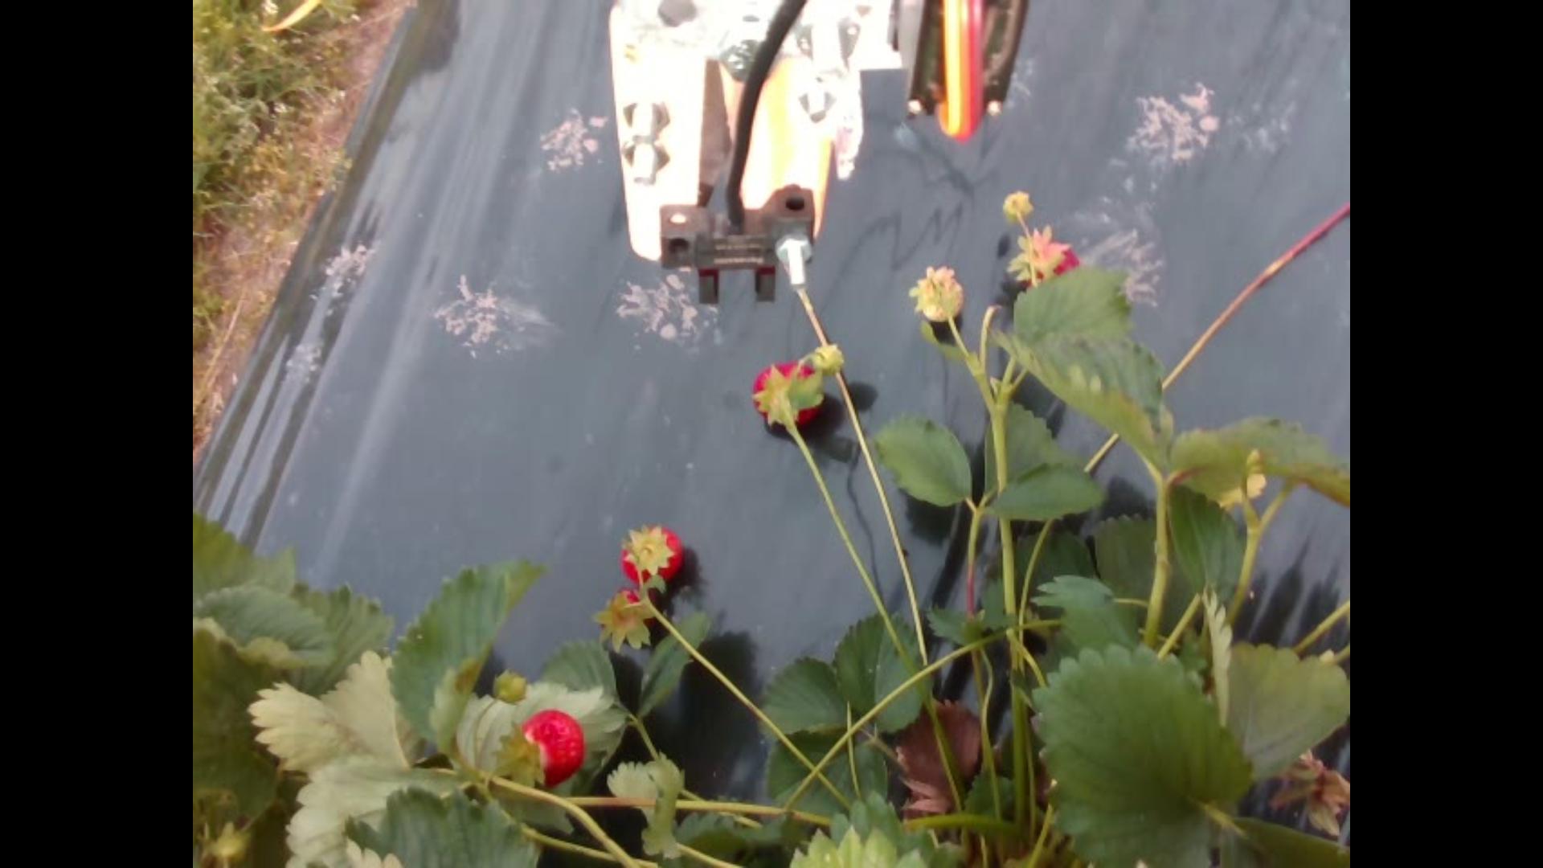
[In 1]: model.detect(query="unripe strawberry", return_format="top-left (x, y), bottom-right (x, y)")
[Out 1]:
top-left (909, 262), bottom-right (973, 334)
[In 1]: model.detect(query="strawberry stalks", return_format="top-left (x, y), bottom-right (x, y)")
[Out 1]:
top-left (480, 741), bottom-right (539, 790)
top-left (631, 547), bottom-right (654, 607)
top-left (926, 272), bottom-right (968, 359)
top-left (1002, 192), bottom-right (1043, 242)
top-left (1011, 235), bottom-right (1046, 294)
top-left (765, 393), bottom-right (817, 465)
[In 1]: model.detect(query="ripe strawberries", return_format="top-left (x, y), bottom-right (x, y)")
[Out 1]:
top-left (739, 358), bottom-right (832, 438)
top-left (521, 707), bottom-right (591, 781)
top-left (1009, 227), bottom-right (1097, 315)
top-left (618, 524), bottom-right (688, 590)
